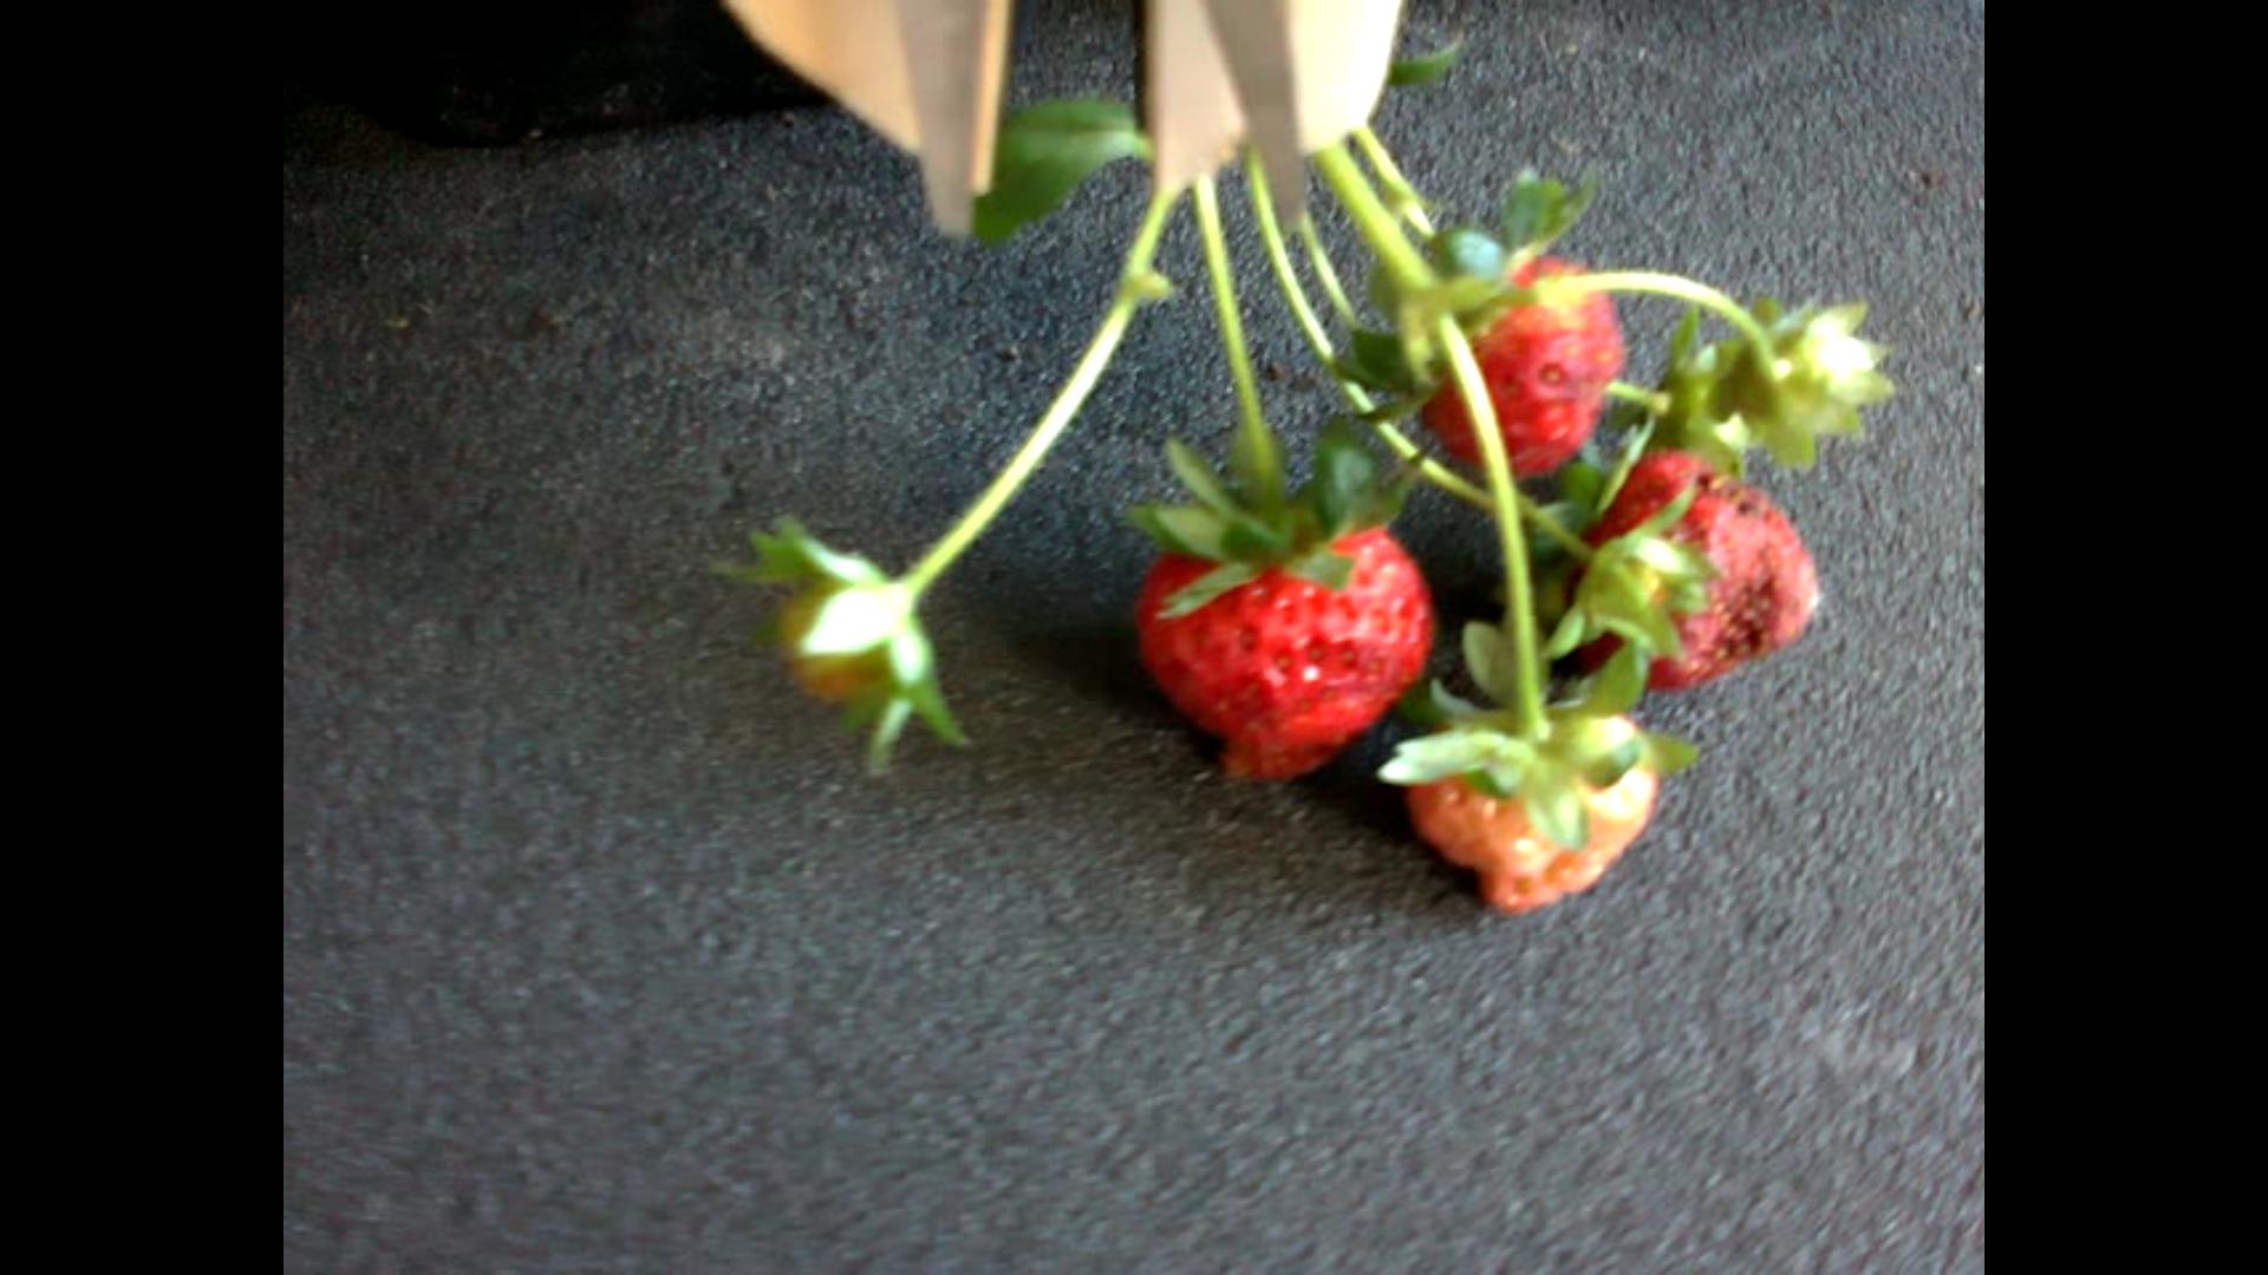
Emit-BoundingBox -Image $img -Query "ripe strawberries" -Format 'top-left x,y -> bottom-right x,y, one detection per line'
1106,509 -> 1412,785
1359,211 -> 1645,449
1563,406 -> 1803,698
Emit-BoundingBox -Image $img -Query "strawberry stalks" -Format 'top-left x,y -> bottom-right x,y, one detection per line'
1389,138 -> 1521,335
888,447 -> 1032,603
1191,251 -> 1320,564
1382,435 -> 1715,600
1699,285 -> 1819,404
1484,408 -> 1562,783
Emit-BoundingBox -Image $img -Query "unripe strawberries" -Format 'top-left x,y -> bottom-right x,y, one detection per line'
1392,696 -> 1721,933
750,565 -> 924,725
